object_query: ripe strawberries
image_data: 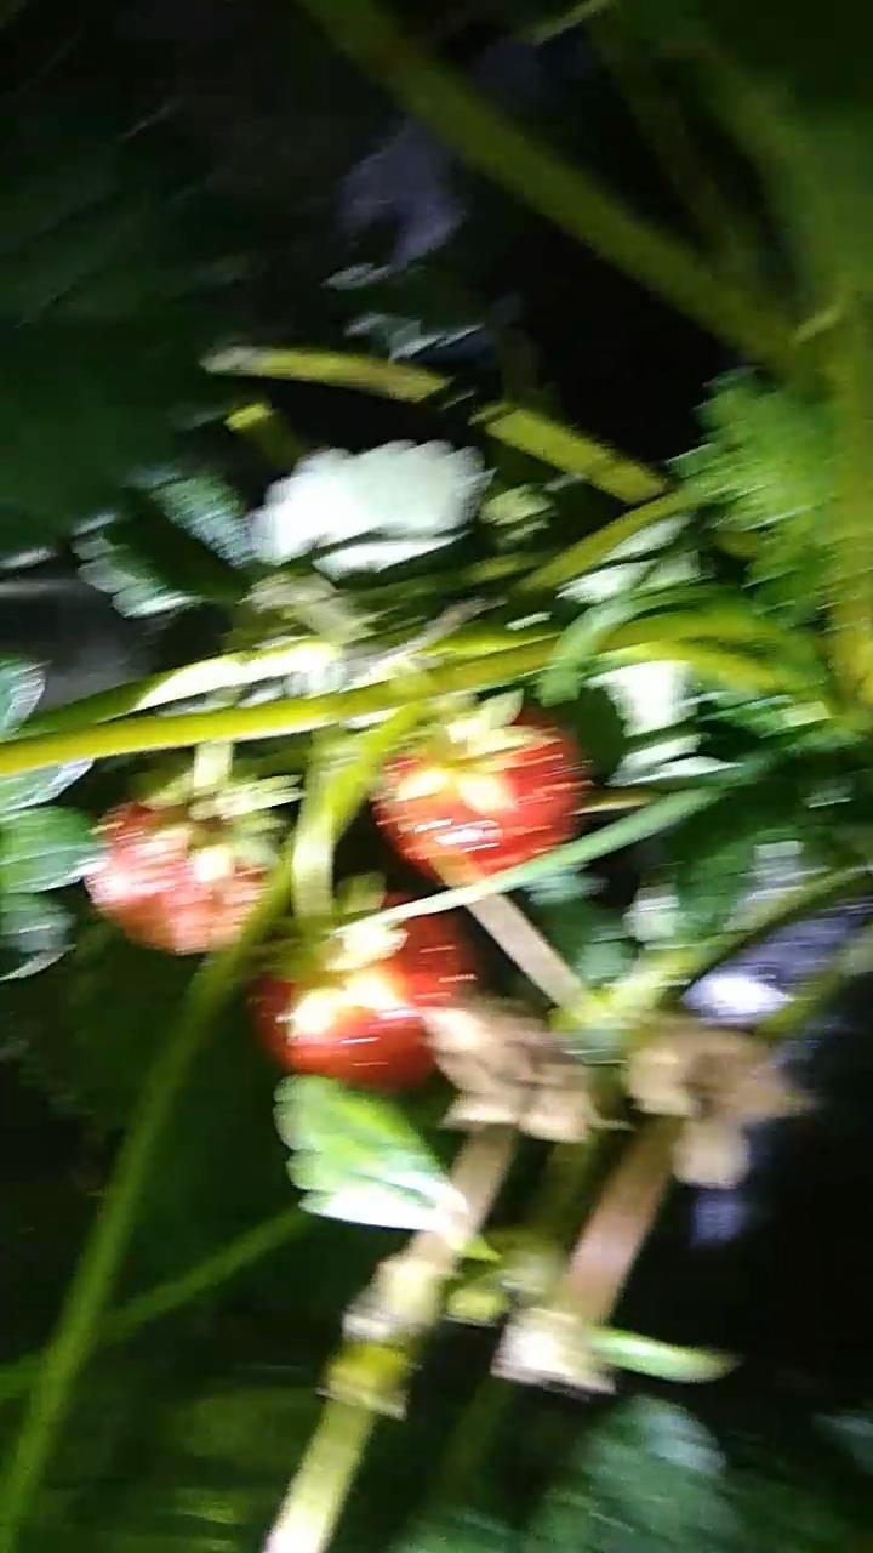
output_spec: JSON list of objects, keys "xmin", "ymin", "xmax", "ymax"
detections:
[
  {"xmin": 255, "ymin": 898, "xmax": 490, "ymax": 1090},
  {"xmin": 374, "ymin": 713, "xmax": 581, "ymax": 868},
  {"xmin": 70, "ymin": 806, "xmax": 286, "ymax": 945}
]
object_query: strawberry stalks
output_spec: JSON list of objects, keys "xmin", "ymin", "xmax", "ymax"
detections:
[
  {"xmin": 326, "ymin": 867, "xmax": 499, "ymax": 937},
  {"xmin": 150, "ymin": 684, "xmax": 239, "ymax": 833}
]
